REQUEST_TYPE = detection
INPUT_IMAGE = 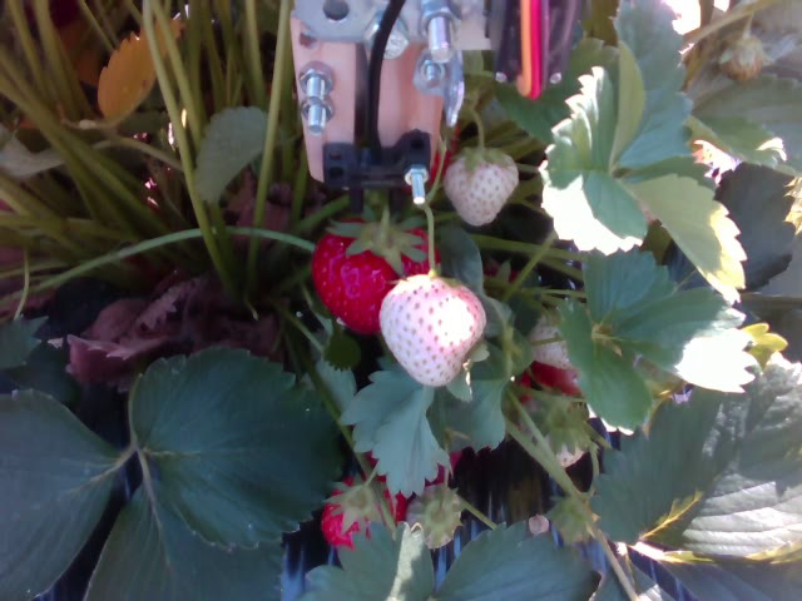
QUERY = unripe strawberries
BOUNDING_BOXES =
[386,281,478,383]
[446,153,515,222]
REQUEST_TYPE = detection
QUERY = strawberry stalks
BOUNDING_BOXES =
[375,181,404,265]
[411,197,453,327]
[458,109,481,177]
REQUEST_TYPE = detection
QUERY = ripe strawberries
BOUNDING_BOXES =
[324,477,398,548]
[312,222,440,327]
